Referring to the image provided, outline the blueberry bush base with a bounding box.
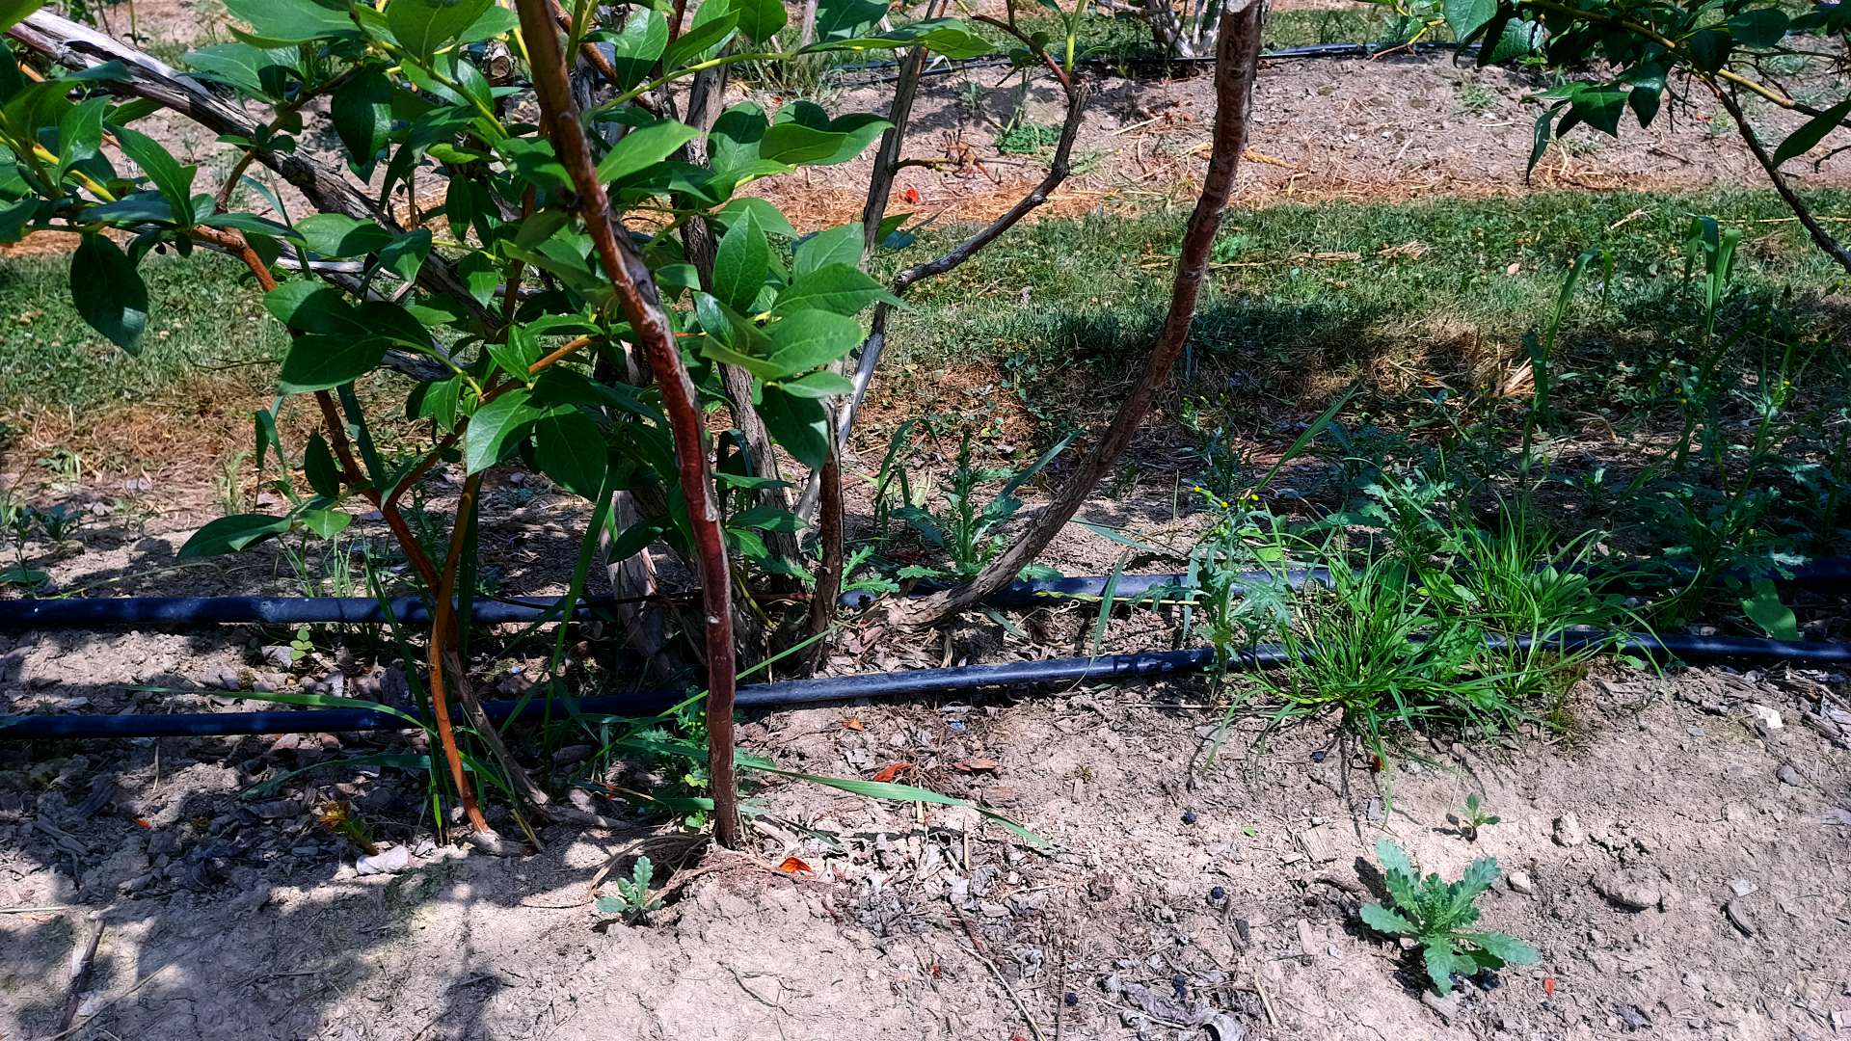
[238,277,1111,880]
